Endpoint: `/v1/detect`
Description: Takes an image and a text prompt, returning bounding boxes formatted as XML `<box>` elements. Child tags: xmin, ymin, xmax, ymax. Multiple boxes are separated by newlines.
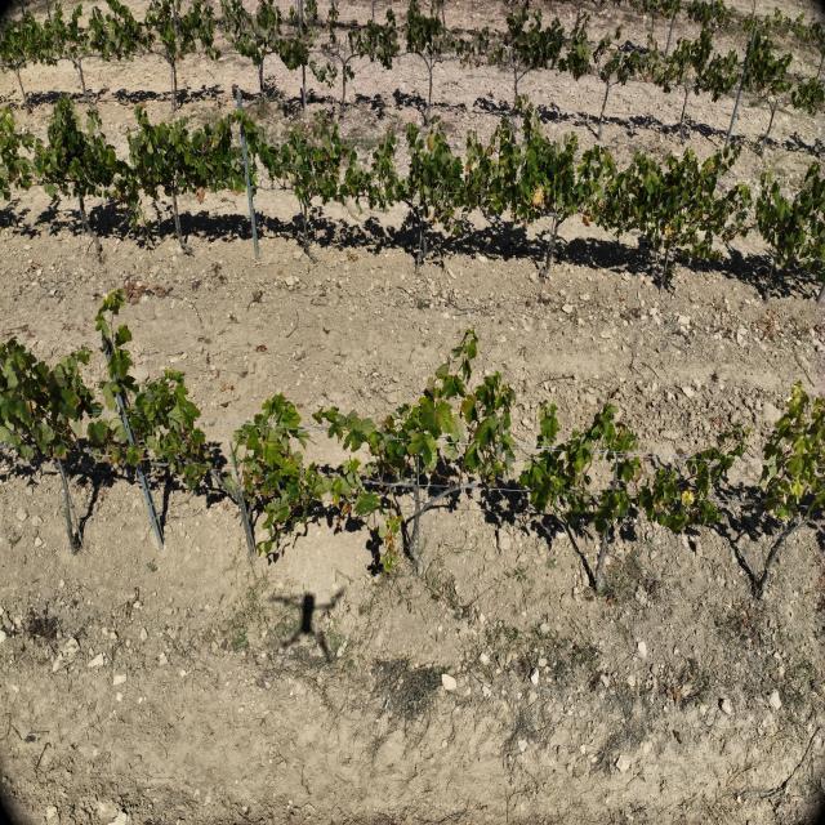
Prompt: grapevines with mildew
<box><xmin>121</xmin><ymin>387</ymin><xmax>331</xmax><ymax>579</ymax></box>
<box><xmin>516</xmin><ymin>398</ymin><xmax>752</xmax><ymax>610</ymax></box>
<box><xmin>309</xmin><ymin>320</ymin><xmax>522</xmax><ymax>585</ymax></box>
<box><xmin>0</xmin><ymin>287</ymin><xmax>137</xmax><ymax>561</ymax></box>
<box><xmin>748</xmin><ymin>374</ymin><xmax>825</xmax><ymax>616</ymax></box>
